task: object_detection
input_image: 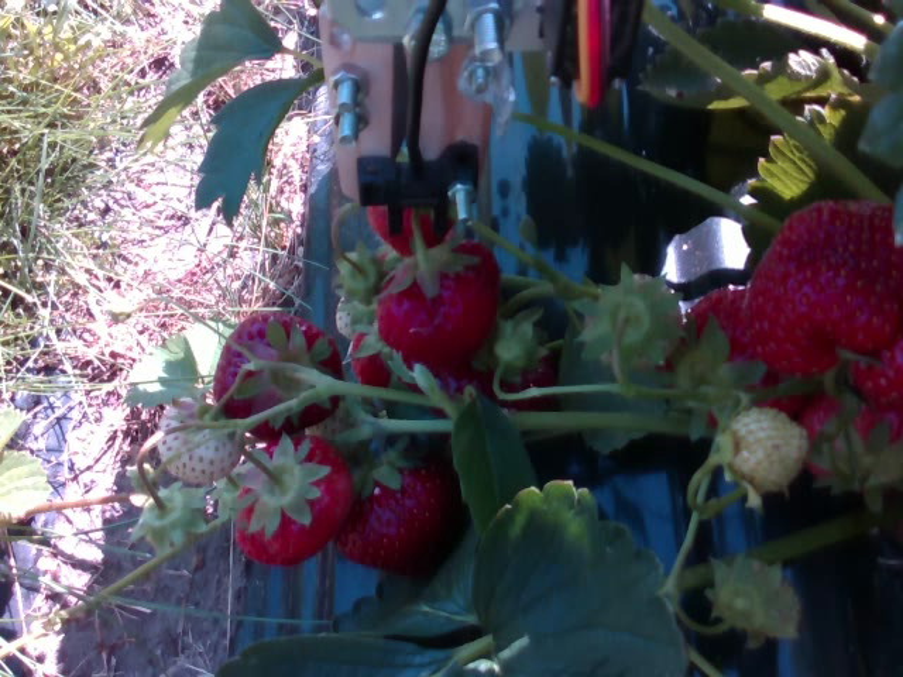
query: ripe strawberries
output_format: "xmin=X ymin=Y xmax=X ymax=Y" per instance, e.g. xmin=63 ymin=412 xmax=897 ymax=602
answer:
xmin=218 ymin=323 xmax=346 ymax=426
xmin=799 ymin=398 xmax=903 ymax=479
xmin=386 ymin=241 xmax=505 ymax=364
xmin=234 ymin=437 xmax=350 ymax=564
xmin=750 ymin=196 xmax=903 ymax=367
xmin=695 ymin=303 xmax=761 ymax=373
xmin=354 ymin=461 xmax=462 ymax=563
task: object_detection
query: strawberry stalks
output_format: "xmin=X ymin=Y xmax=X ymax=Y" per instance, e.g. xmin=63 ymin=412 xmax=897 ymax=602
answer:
xmin=410 ymin=200 xmax=445 ymax=302
xmin=235 ymin=353 xmax=382 ymax=394
xmin=236 ymin=431 xmax=285 ymax=504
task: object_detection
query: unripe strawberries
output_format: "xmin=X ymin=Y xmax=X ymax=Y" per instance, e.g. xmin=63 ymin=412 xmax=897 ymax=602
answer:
xmin=166 ymin=409 xmax=244 ymax=479
xmin=720 ymin=410 xmax=812 ymax=487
